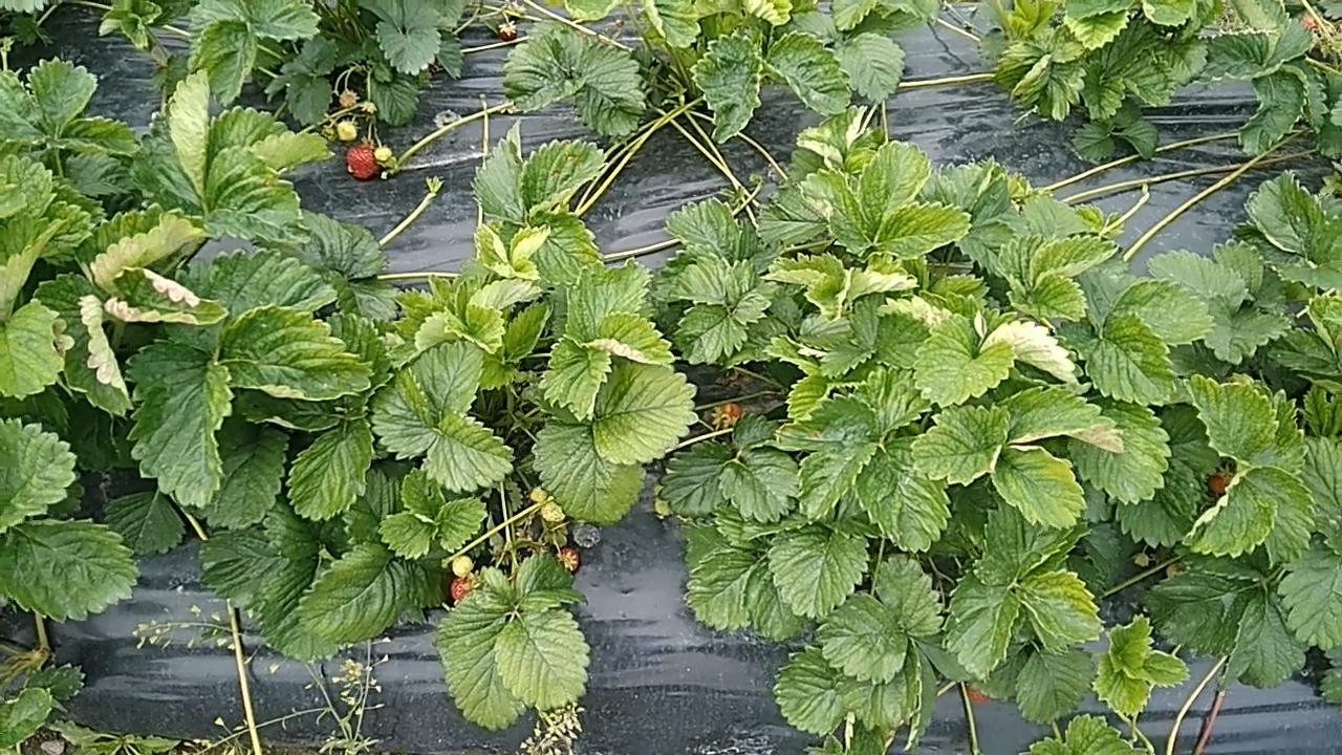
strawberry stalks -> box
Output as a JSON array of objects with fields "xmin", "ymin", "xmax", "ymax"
[
  {"xmin": 498, "ymin": 4, "xmax": 517, "ymax": 33},
  {"xmin": 374, "ymin": 124, "xmax": 395, "ymax": 159},
  {"xmin": 363, "ymin": 124, "xmax": 380, "ymax": 151},
  {"xmin": 340, "ymin": 74, "xmax": 356, "ymax": 99}
]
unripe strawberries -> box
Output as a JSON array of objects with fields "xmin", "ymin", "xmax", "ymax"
[
  {"xmin": 374, "ymin": 147, "xmax": 393, "ymax": 162},
  {"xmin": 452, "ymin": 559, "xmax": 475, "ymax": 577},
  {"xmin": 338, "ymin": 123, "xmax": 359, "ymax": 141},
  {"xmin": 541, "ymin": 503, "xmax": 565, "ymax": 522}
]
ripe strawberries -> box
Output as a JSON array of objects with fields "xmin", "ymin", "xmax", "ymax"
[
  {"xmin": 958, "ymin": 671, "xmax": 1001, "ymax": 709},
  {"xmin": 346, "ymin": 144, "xmax": 376, "ymax": 180},
  {"xmin": 713, "ymin": 403, "xmax": 743, "ymax": 428},
  {"xmin": 451, "ymin": 577, "xmax": 471, "ymax": 600},
  {"xmin": 492, "ymin": 20, "xmax": 522, "ymax": 49},
  {"xmin": 555, "ymin": 549, "xmax": 582, "ymax": 572},
  {"xmin": 1206, "ymin": 462, "xmax": 1242, "ymax": 498}
]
